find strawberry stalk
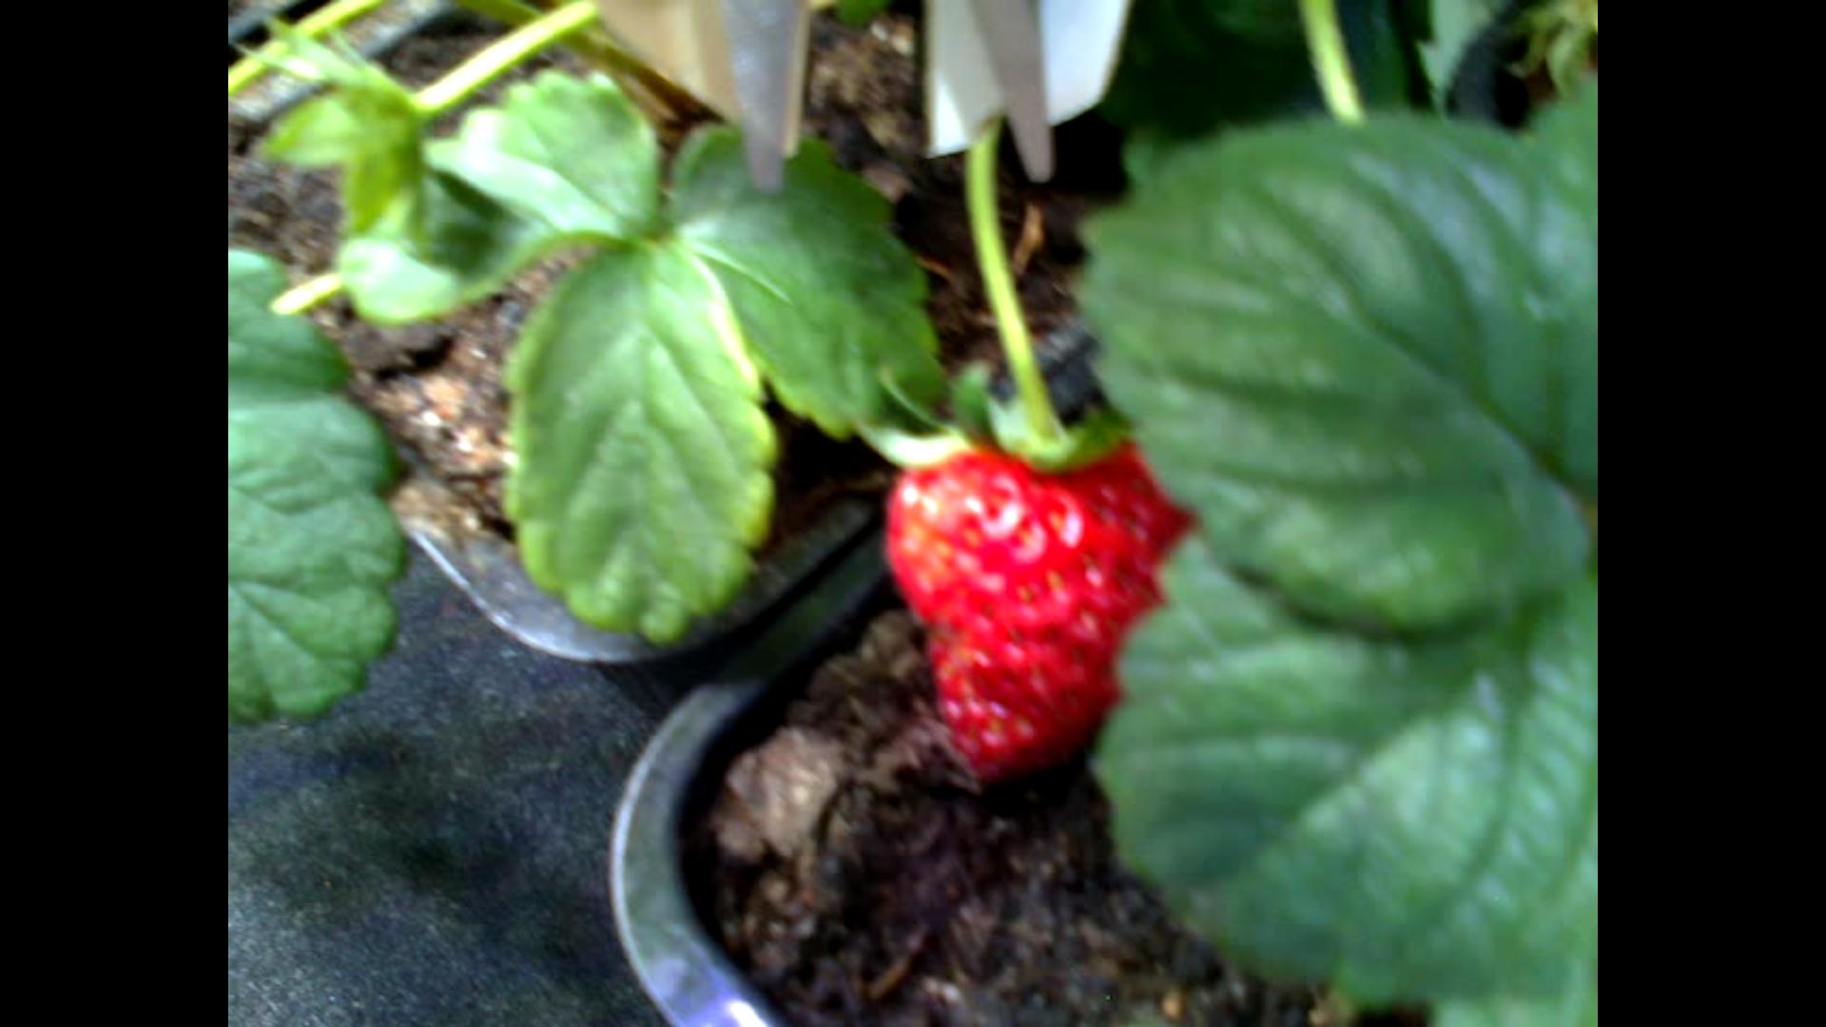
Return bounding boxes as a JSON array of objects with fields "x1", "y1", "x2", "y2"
[{"x1": 975, "y1": 153, "x2": 1130, "y2": 498}]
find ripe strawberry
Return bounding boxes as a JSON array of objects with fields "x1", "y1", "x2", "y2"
[{"x1": 868, "y1": 410, "x2": 1212, "y2": 789}]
